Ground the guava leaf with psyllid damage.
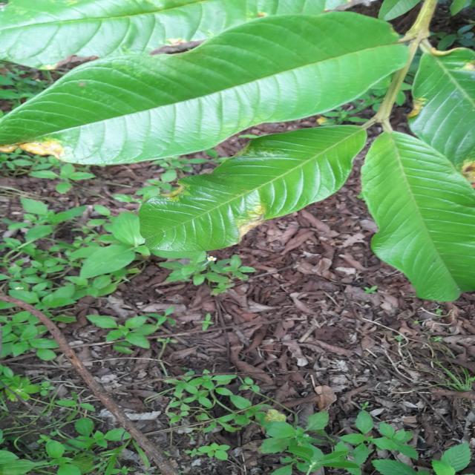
[96,122,370,267]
